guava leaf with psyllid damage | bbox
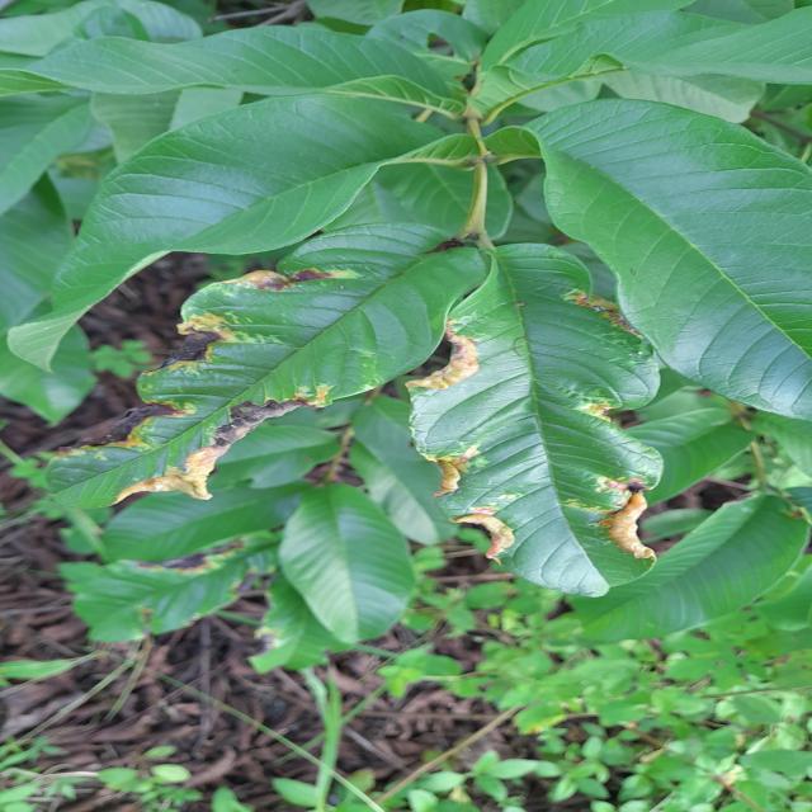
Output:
[412,240,707,610]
